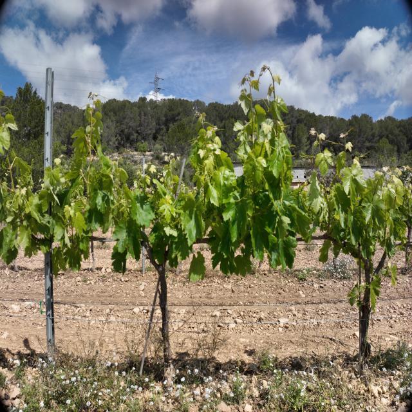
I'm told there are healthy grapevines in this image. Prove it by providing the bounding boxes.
[302,116,412,363]
[39,62,308,384]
